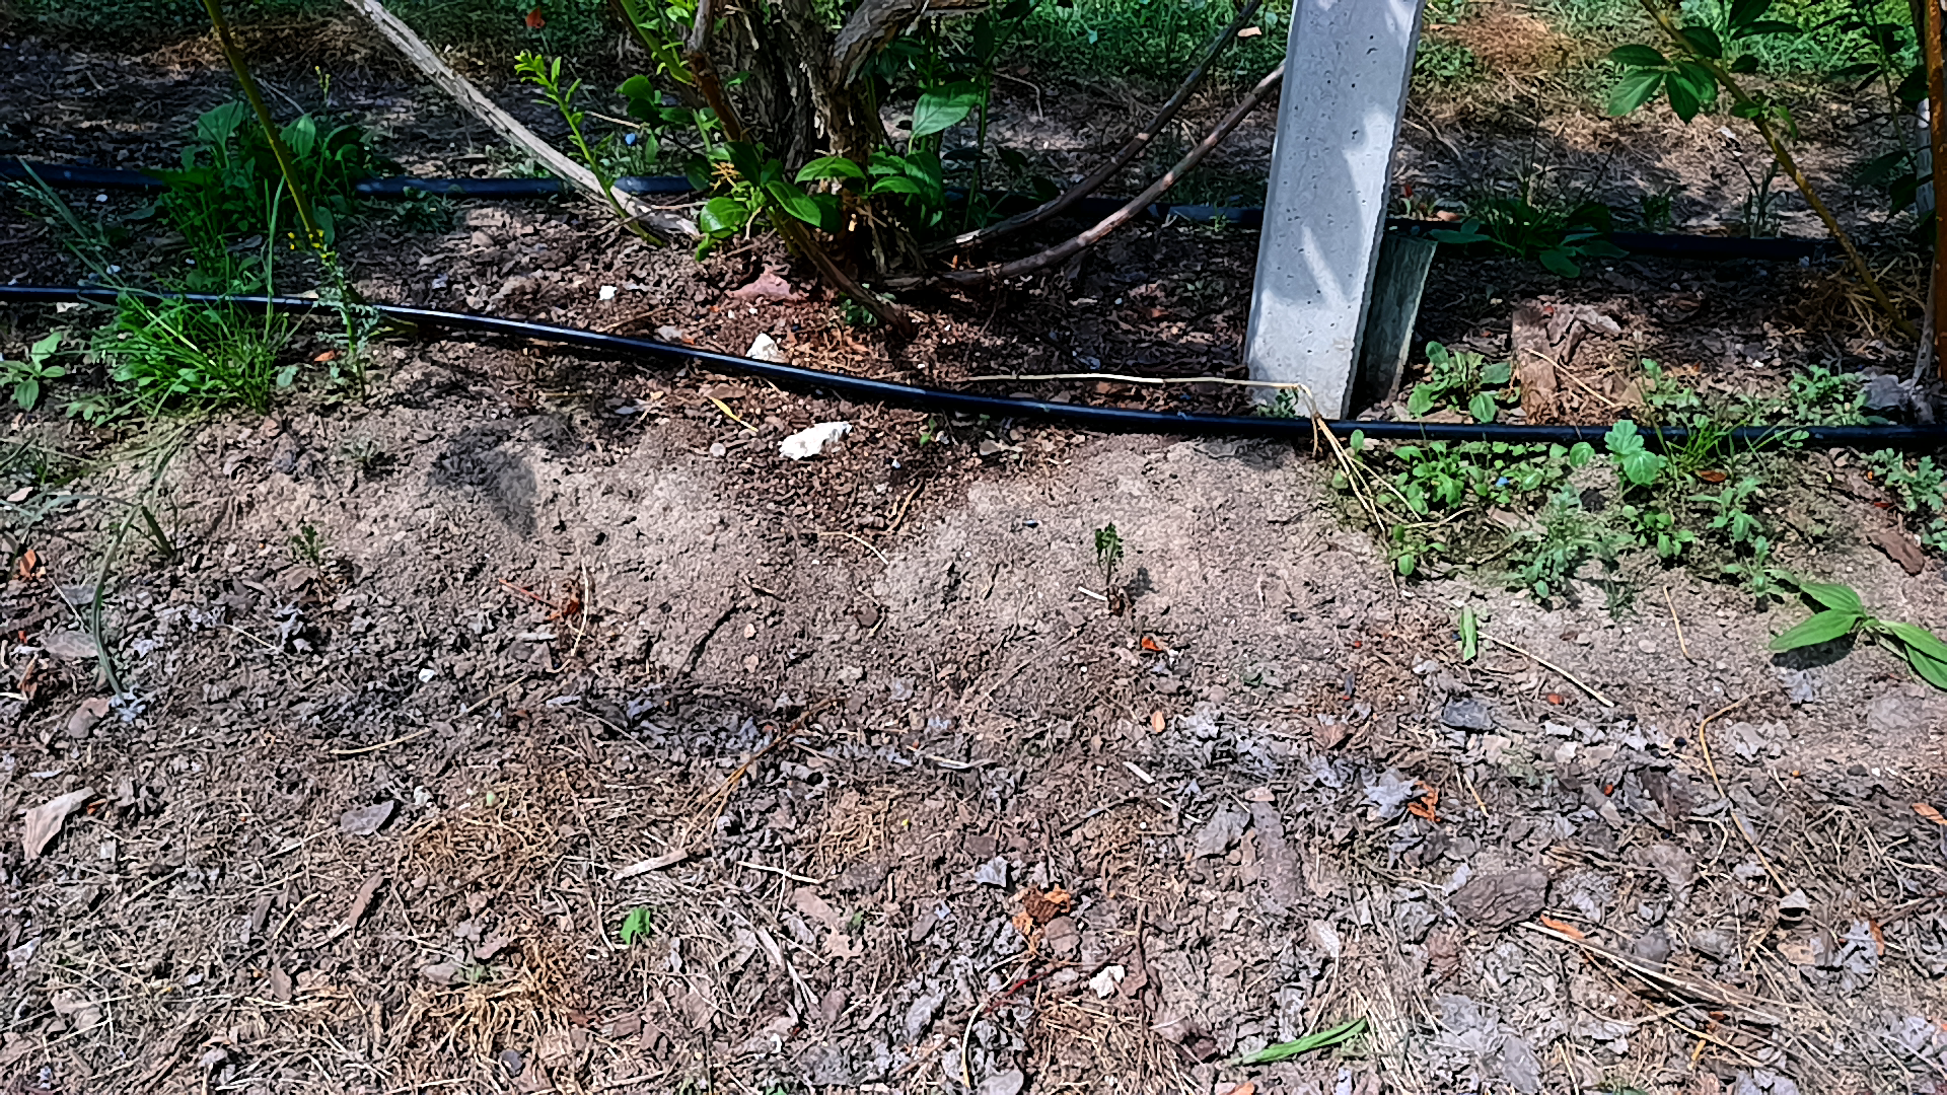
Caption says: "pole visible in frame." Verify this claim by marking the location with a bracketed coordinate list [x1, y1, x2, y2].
[1240, 12, 1412, 419]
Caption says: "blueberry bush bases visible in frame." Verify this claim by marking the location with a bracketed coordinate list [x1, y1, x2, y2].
[641, 75, 1210, 421]
[1787, 93, 1947, 493]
